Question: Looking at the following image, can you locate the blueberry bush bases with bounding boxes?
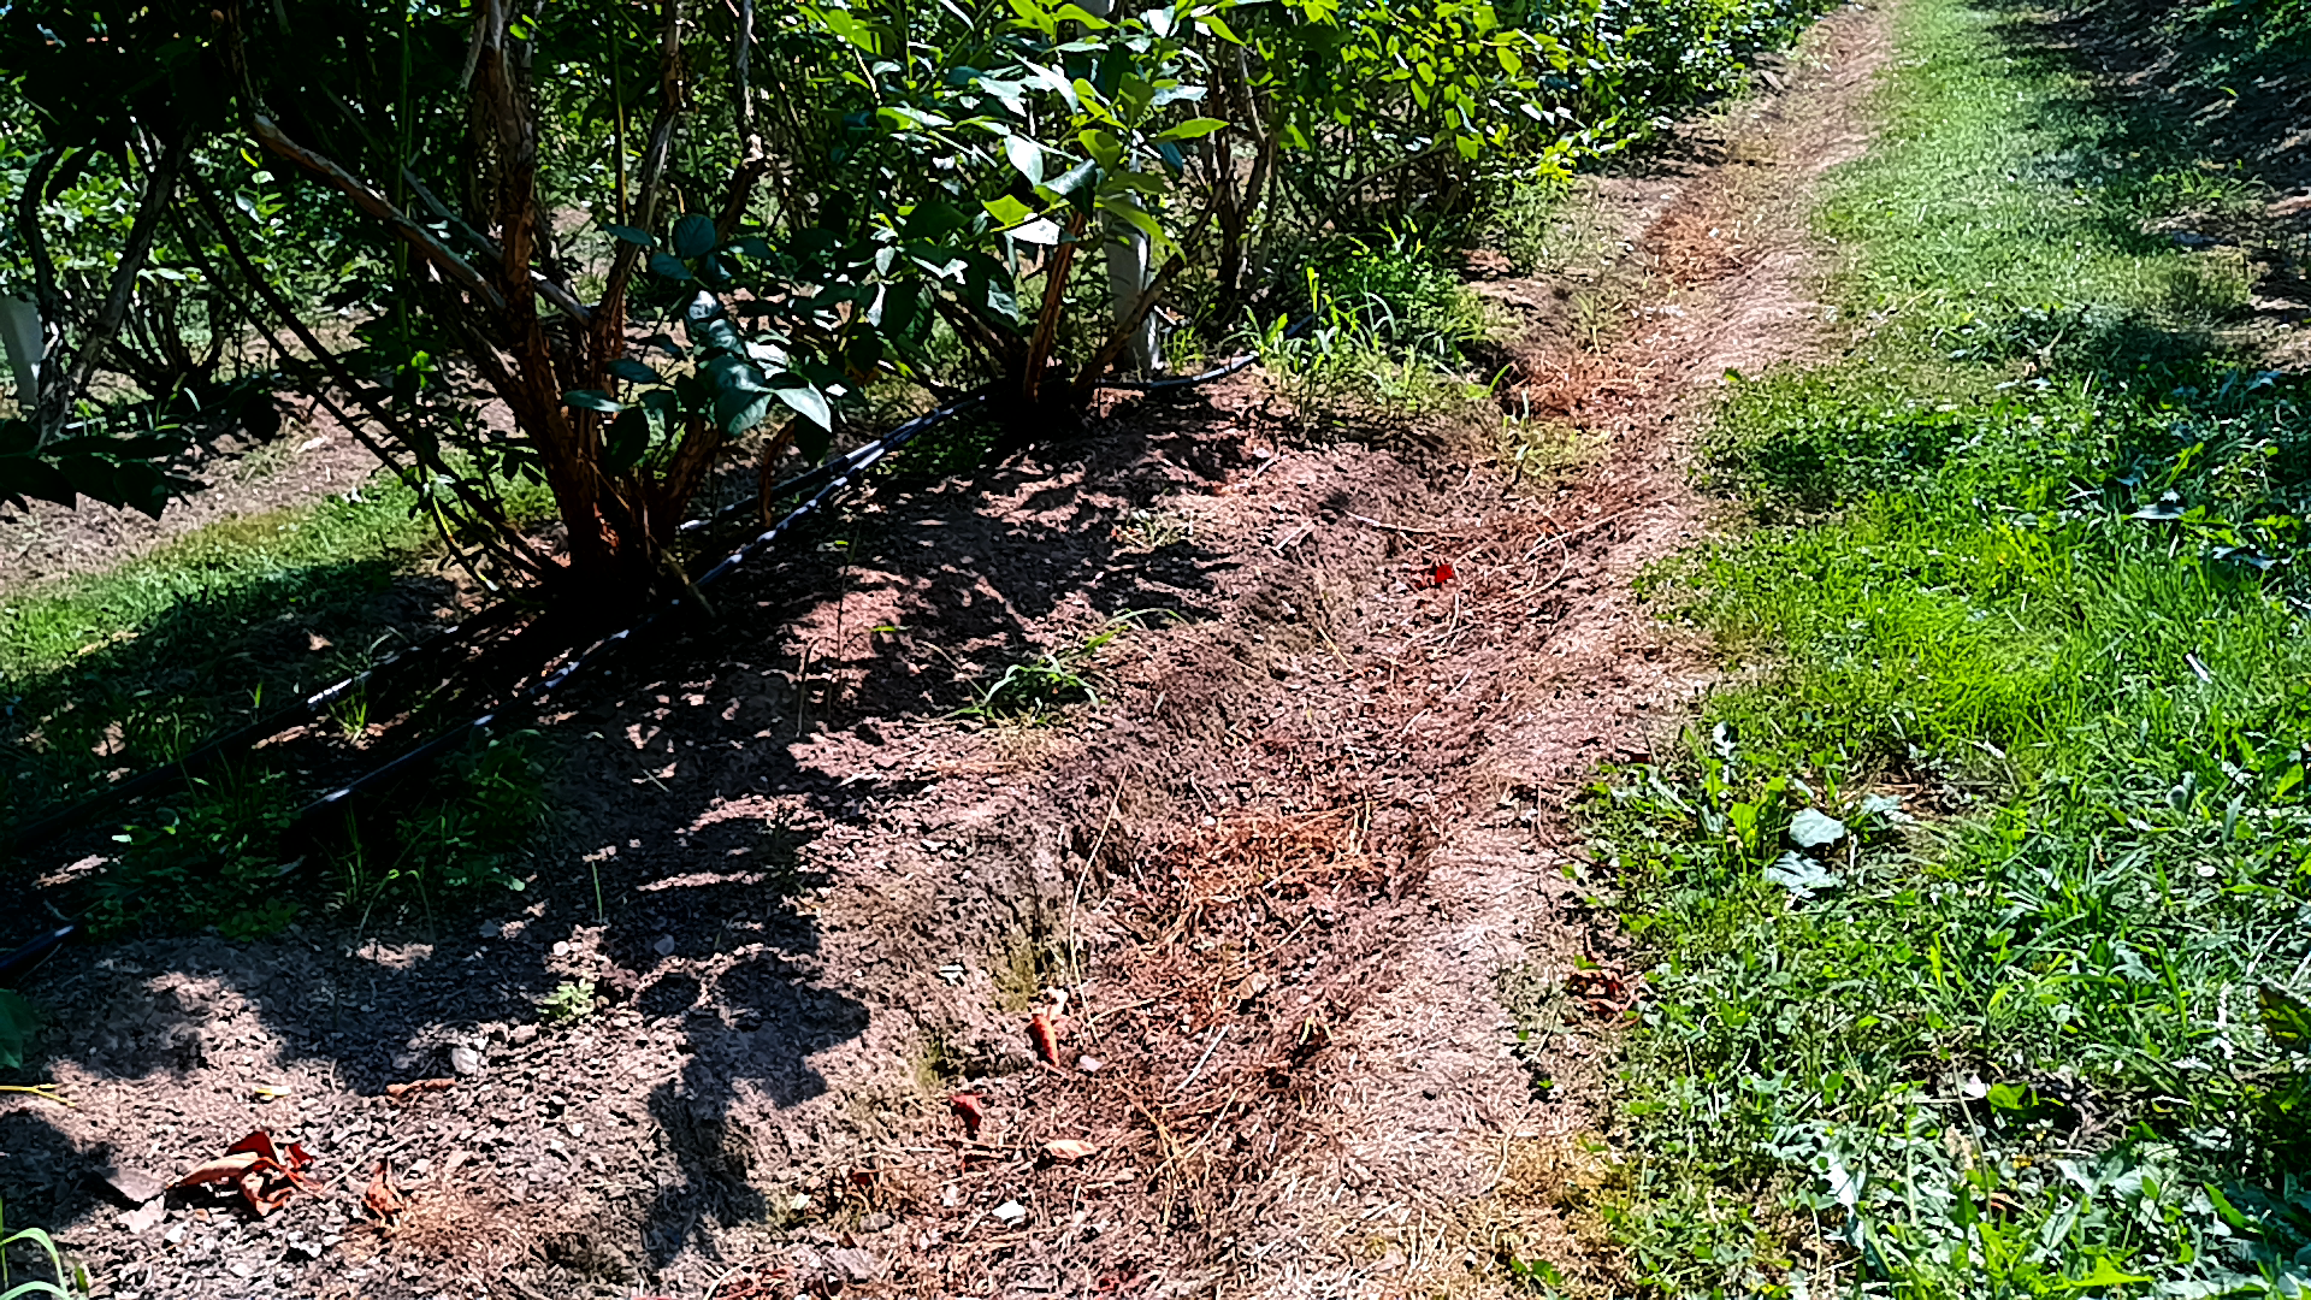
[839,274,1139,475]
[363,354,771,694]
[75,275,258,430]
[1312,167,1454,277]
[1177,200,1303,360]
